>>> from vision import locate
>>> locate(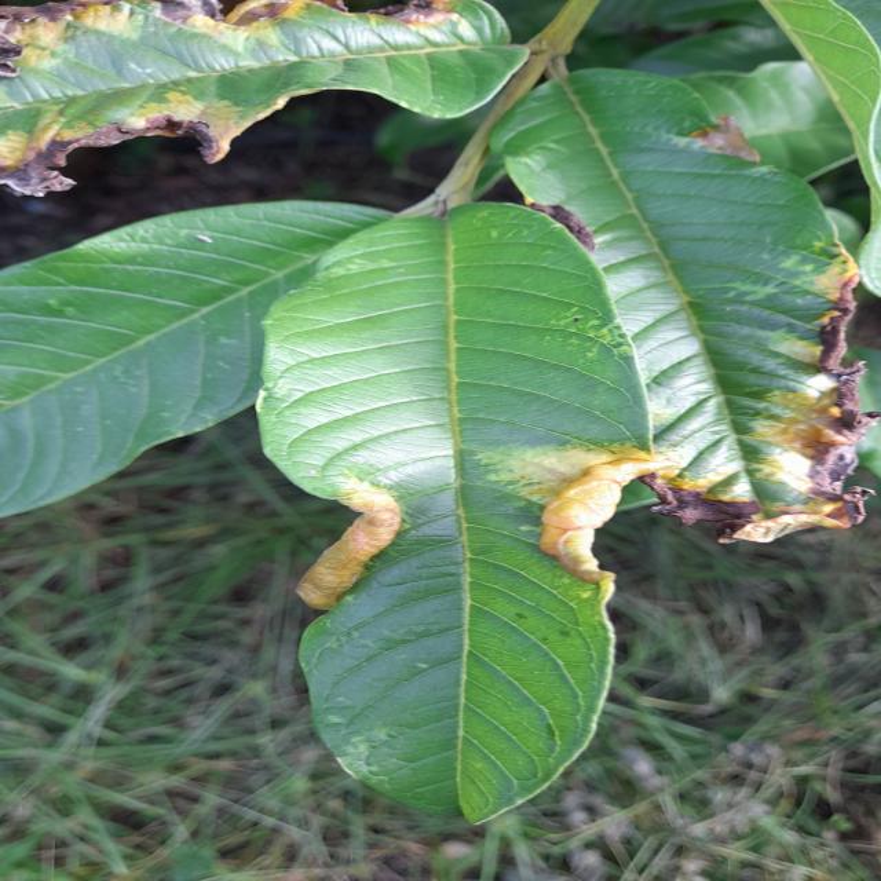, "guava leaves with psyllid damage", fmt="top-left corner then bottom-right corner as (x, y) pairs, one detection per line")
(486, 69), (880, 553)
(248, 193), (699, 847)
